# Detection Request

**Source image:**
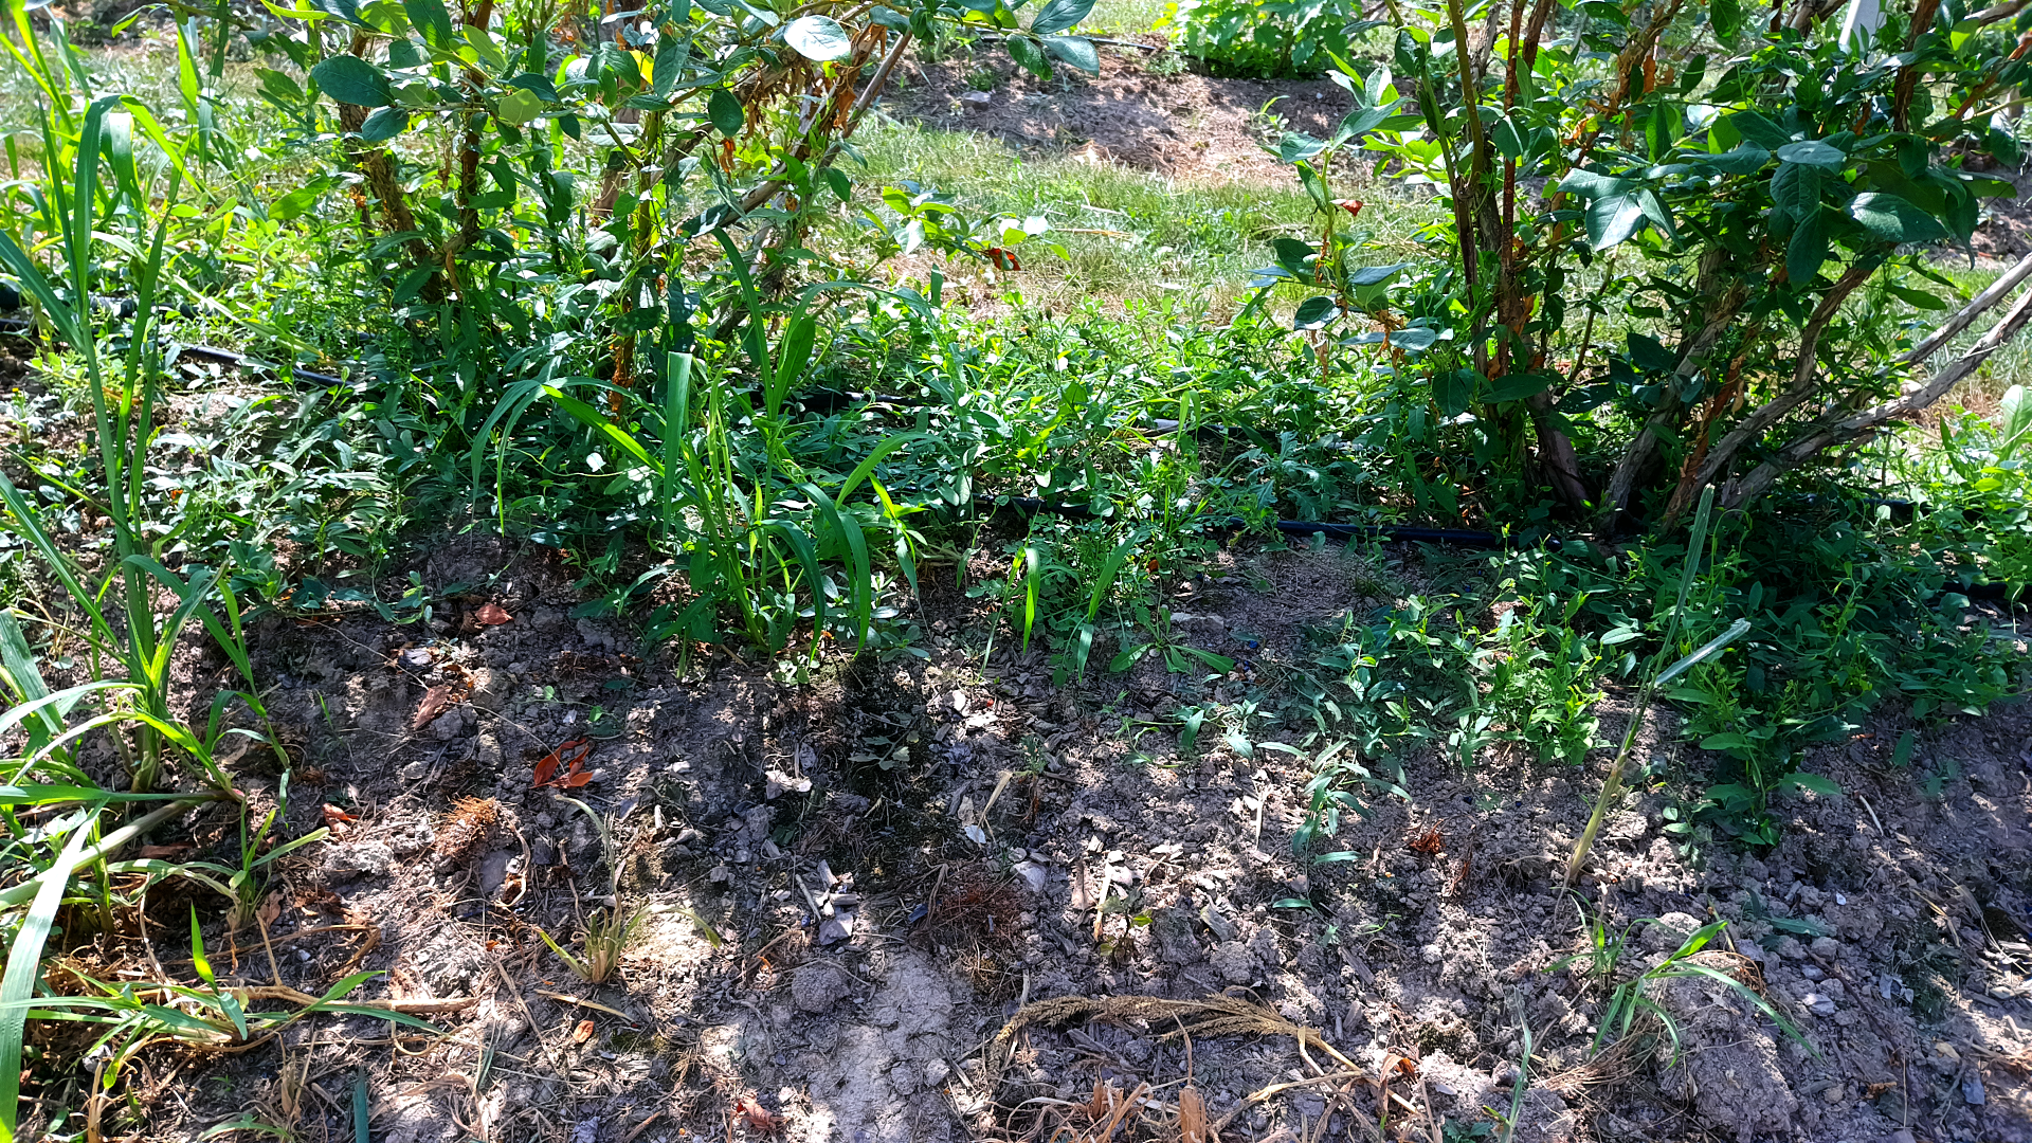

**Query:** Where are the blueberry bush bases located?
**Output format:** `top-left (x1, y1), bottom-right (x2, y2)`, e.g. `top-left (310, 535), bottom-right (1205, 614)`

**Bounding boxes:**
top-left (284, 162), bottom-right (851, 581)
top-left (1389, 262), bottom-right (1916, 658)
